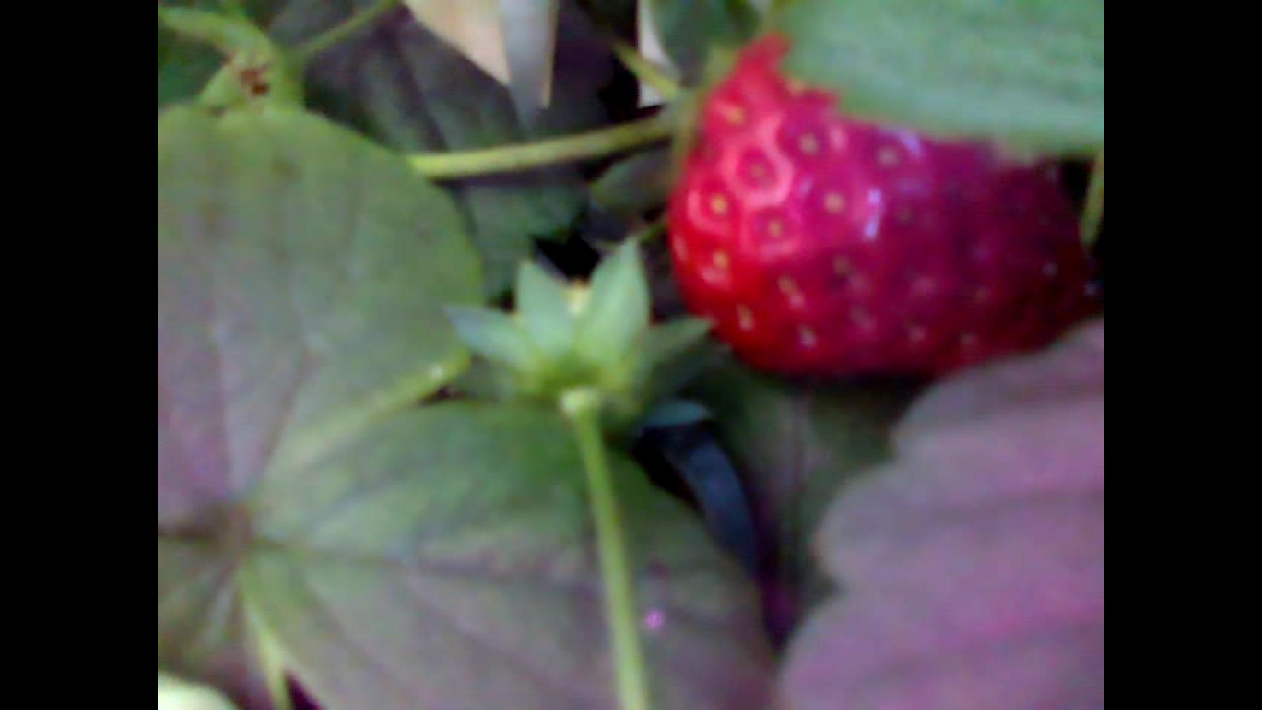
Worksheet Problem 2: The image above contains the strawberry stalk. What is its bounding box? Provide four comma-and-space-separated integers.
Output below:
516, 249, 642, 551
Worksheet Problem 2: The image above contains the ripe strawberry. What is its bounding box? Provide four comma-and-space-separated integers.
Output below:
649, 19, 1092, 360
